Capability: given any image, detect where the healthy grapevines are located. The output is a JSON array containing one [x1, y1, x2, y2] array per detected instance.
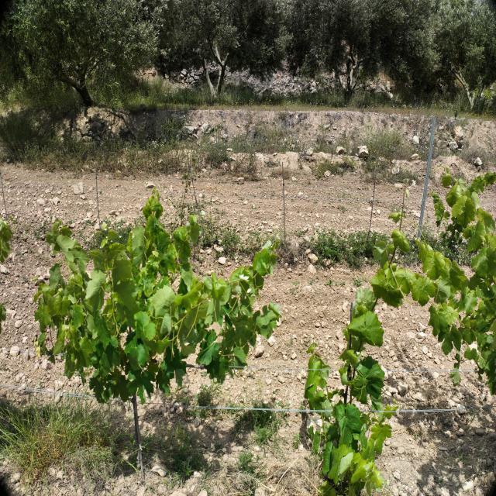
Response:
[[29, 186, 286, 492], [294, 222, 424, 496]]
